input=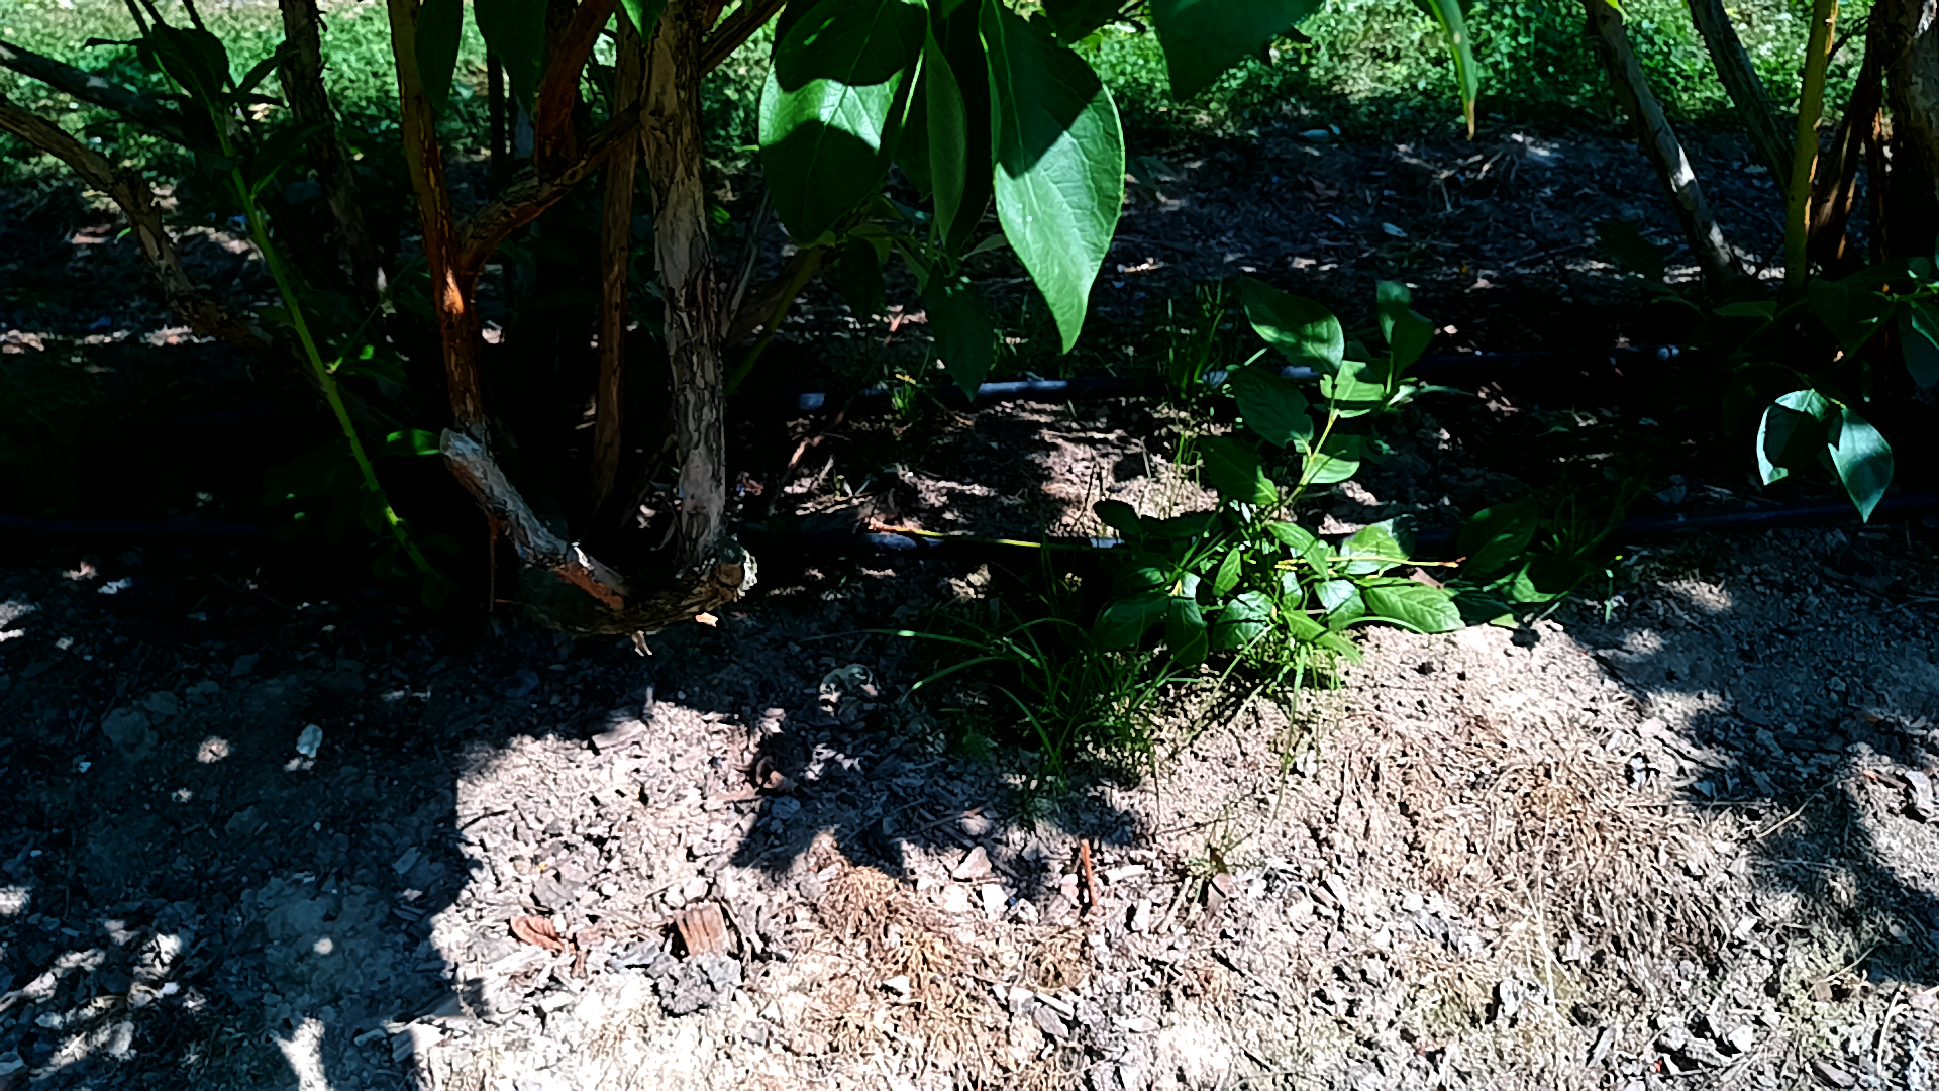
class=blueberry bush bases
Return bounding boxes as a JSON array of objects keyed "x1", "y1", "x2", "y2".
[
  {"x1": 1585, "y1": 60, "x2": 1936, "y2": 560},
  {"x1": 195, "y1": 218, "x2": 834, "y2": 739}
]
